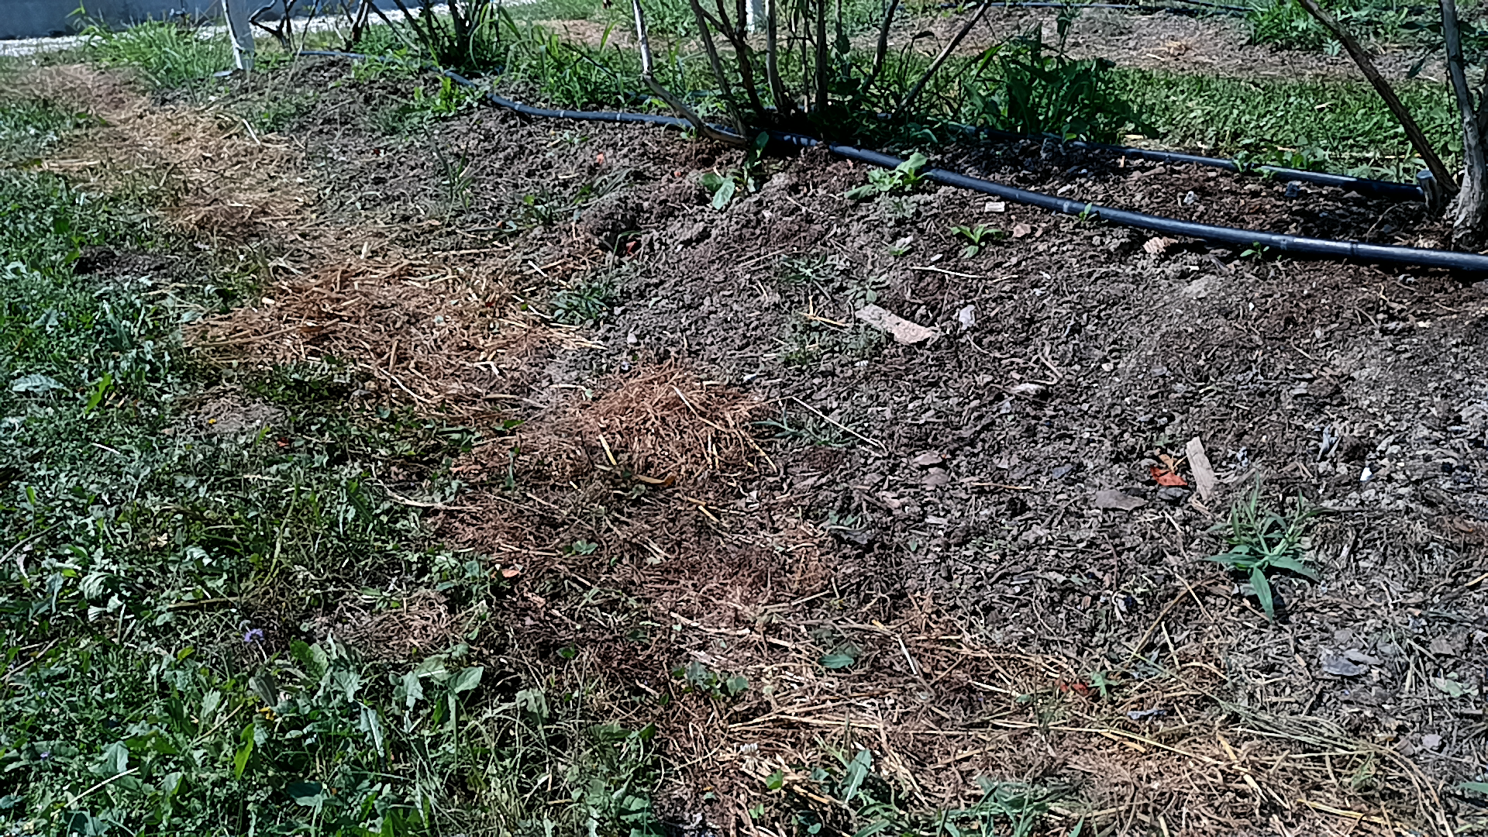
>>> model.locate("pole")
[228,8,263,88]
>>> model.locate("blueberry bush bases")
[395,12,512,91]
[260,14,381,64]
[1374,92,1488,278]
[680,56,942,194]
